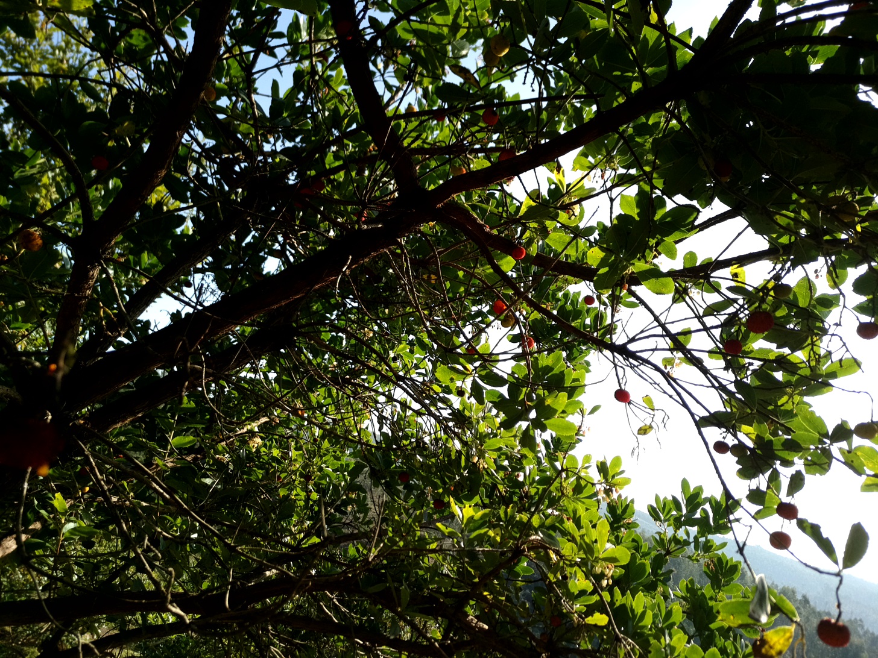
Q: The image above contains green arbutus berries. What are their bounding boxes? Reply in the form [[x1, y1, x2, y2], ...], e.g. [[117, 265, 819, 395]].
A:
[[482, 49, 501, 67], [121, 118, 137, 136], [853, 420, 878, 441], [837, 200, 860, 220], [729, 442, 750, 458], [772, 283, 793, 299]]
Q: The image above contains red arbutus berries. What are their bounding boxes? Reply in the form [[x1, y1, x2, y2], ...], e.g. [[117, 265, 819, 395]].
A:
[[433, 497, 446, 510], [549, 614, 561, 627], [613, 388, 631, 404], [519, 336, 535, 350], [511, 246, 525, 260], [769, 530, 791, 551], [91, 156, 109, 172], [723, 338, 743, 354], [746, 310, 777, 336], [397, 470, 411, 482], [465, 348, 477, 354], [584, 295, 595, 305], [775, 499, 800, 521], [816, 616, 851, 649], [713, 440, 730, 456], [497, 150, 518, 165], [855, 319, 878, 341], [481, 107, 500, 126], [432, 110, 447, 121], [493, 301, 507, 316]]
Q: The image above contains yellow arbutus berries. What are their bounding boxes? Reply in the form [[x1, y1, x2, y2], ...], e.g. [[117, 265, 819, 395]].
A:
[[504, 313, 516, 323], [18, 228, 43, 253], [202, 87, 218, 102], [489, 32, 511, 57], [406, 104, 418, 114], [452, 166, 466, 177], [500, 317, 512, 328]]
